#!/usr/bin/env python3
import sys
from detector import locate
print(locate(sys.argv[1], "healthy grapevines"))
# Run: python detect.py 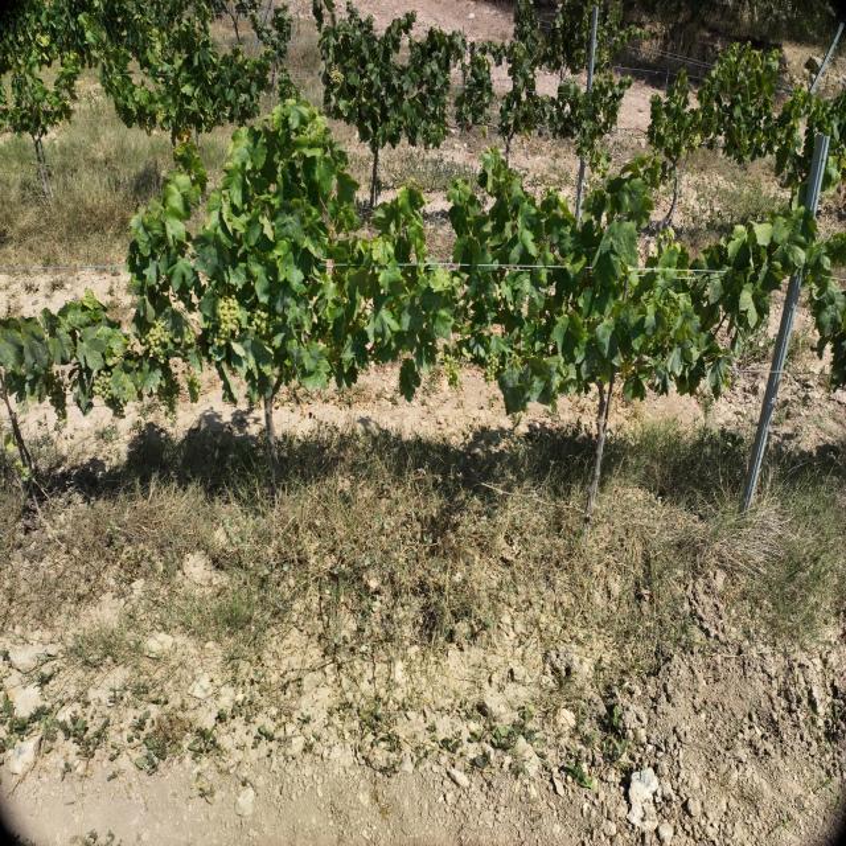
[459,139,831,543]
[123,111,464,492]
[0,282,132,510]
